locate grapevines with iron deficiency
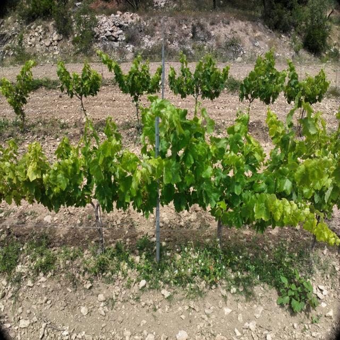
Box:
[0,120,155,260]
[271,107,340,260]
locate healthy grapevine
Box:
[155,107,279,260]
